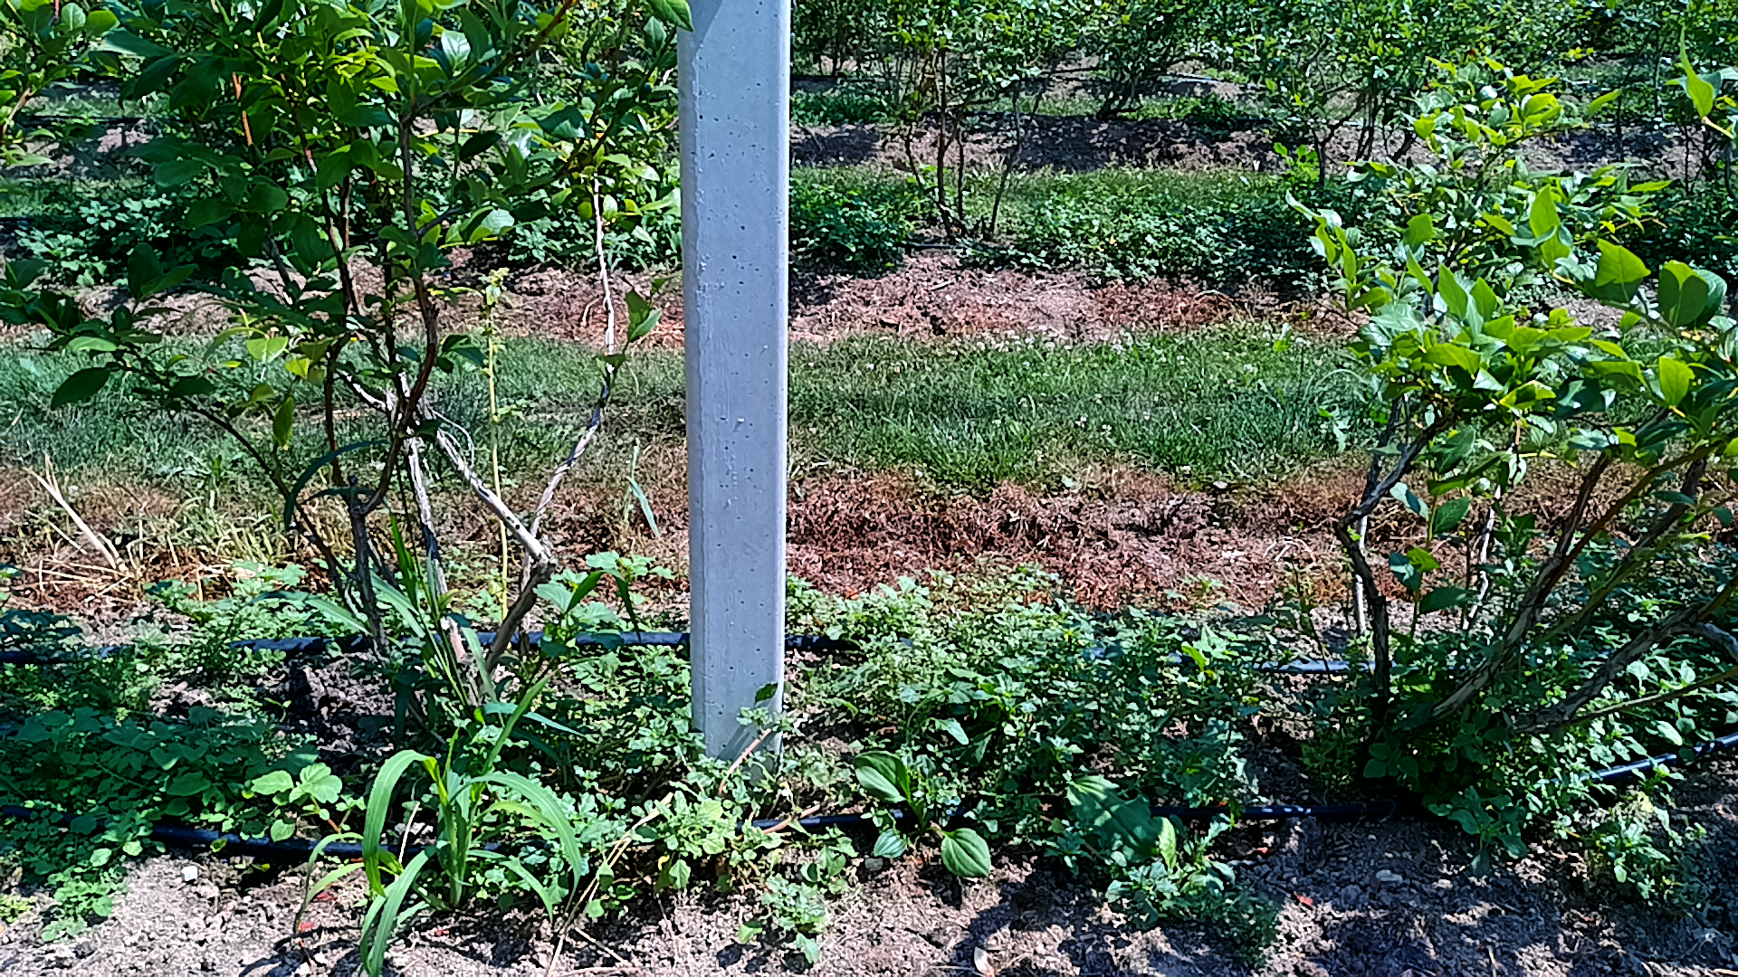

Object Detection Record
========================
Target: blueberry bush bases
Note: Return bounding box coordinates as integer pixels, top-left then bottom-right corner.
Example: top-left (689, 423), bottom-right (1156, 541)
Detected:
top-left (235, 423), bottom-right (625, 788)
top-left (1243, 390), bottom-right (1670, 880)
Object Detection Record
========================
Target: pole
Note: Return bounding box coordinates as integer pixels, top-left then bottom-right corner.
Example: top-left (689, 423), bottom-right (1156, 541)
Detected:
top-left (661, 1), bottom-right (810, 818)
